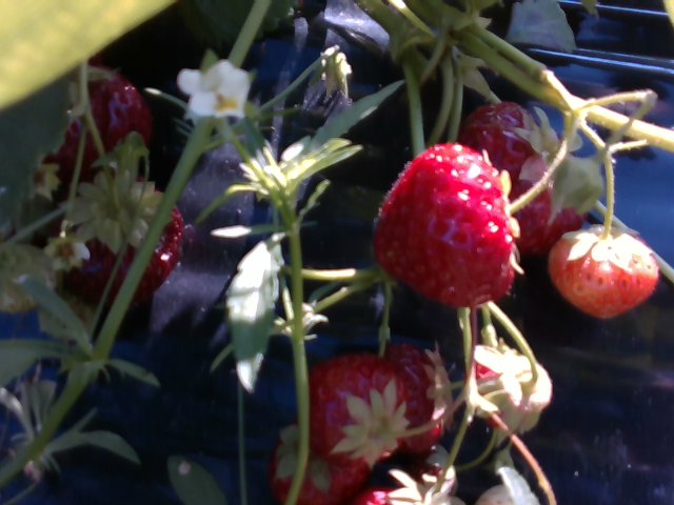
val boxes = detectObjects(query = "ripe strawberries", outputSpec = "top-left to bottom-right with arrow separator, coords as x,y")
68,65 -> 147,170
273,430 -> 368,504
375,151 -> 527,297
464,339 -> 547,432
382,349 -> 468,451
542,230 -> 666,308
299,358 -> 413,454
91,185 -> 186,286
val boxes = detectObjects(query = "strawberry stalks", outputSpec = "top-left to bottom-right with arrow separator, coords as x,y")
491,143 -> 572,224
505,310 -> 538,402
599,143 -> 621,258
